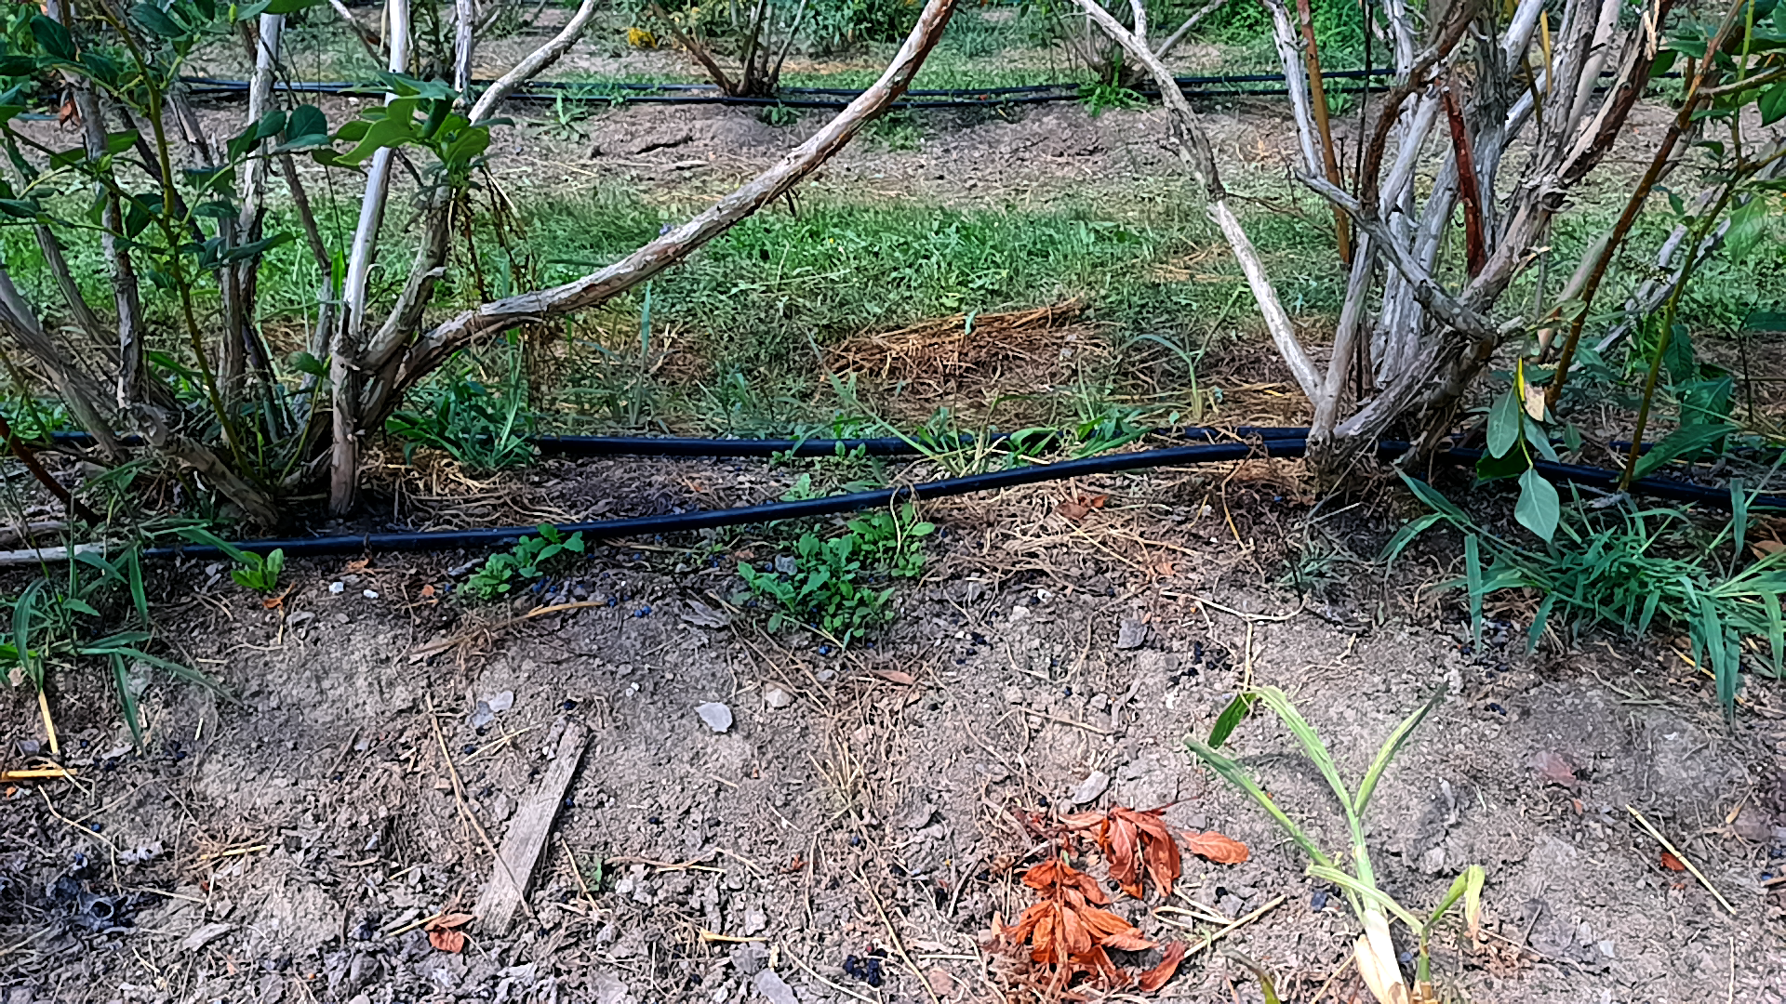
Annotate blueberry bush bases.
[1181,178,1716,598]
[20,284,494,602]
[701,50,798,116]
[1065,33,1174,113]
